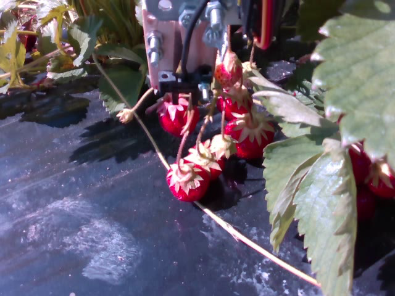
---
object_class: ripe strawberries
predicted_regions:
[187,147,223,176]
[215,58,241,84]
[219,90,252,116]
[167,162,203,199]
[370,161,395,199]
[161,103,199,133]
[230,118,278,155]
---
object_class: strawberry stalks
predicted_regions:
[198,119,209,163]
[173,127,192,181]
